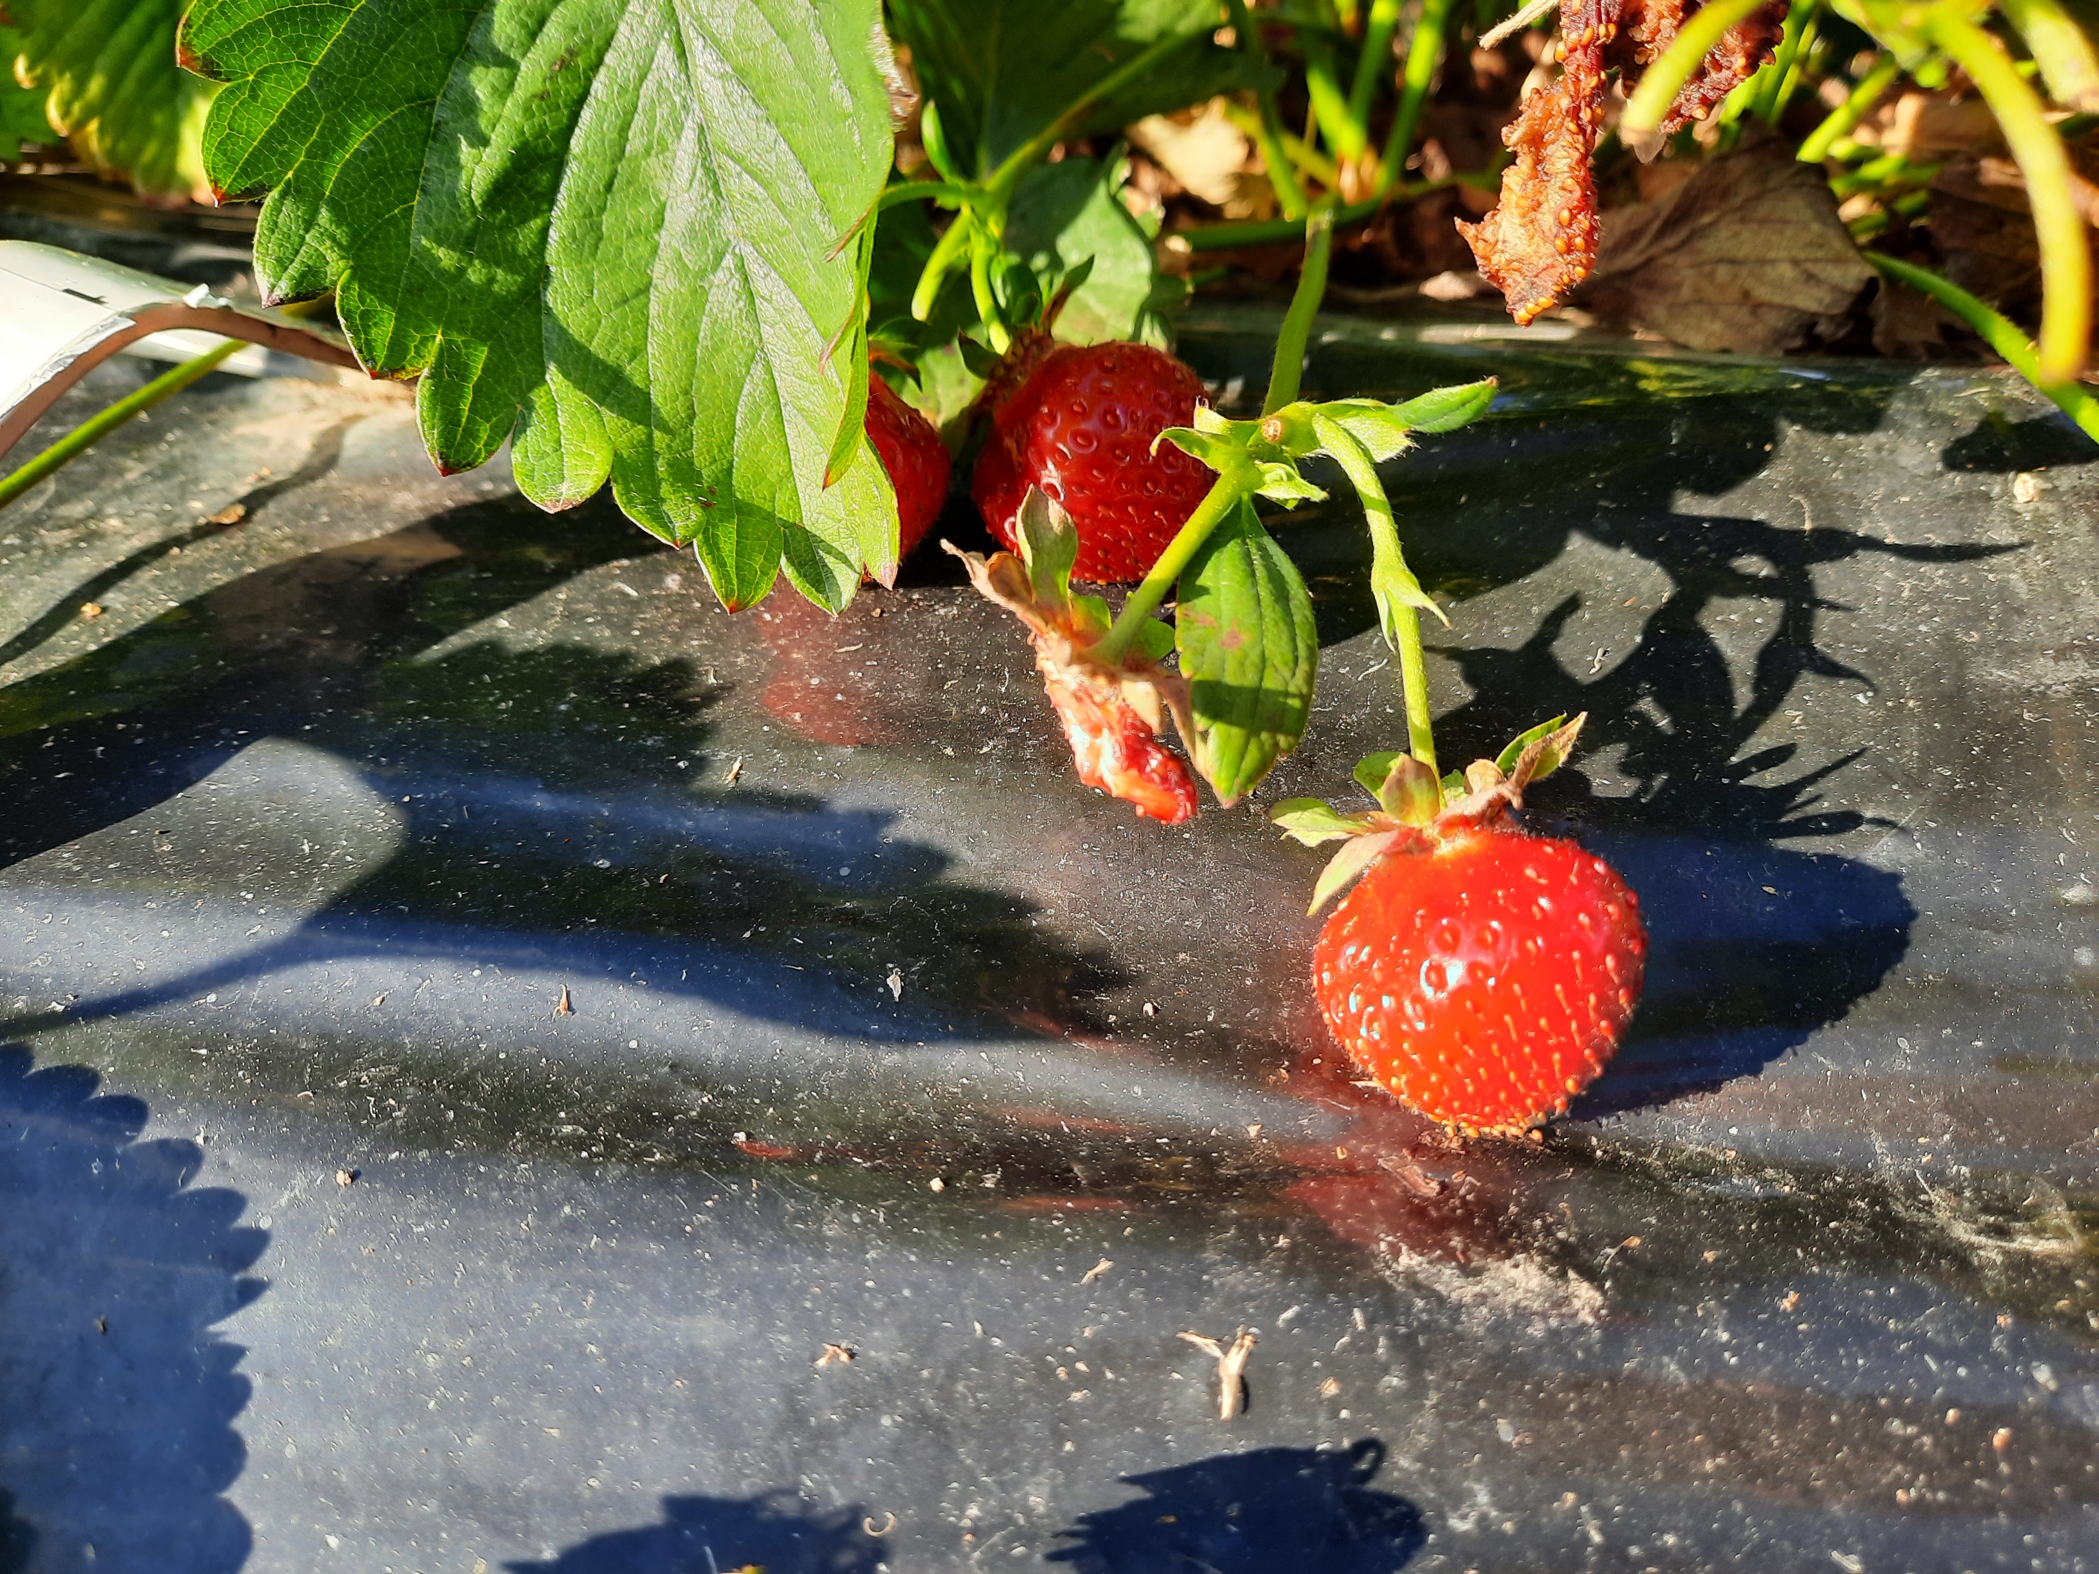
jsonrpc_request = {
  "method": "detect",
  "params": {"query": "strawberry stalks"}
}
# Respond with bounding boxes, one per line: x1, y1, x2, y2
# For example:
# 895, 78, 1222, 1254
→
1347, 449, 1436, 913
956, 209, 1052, 415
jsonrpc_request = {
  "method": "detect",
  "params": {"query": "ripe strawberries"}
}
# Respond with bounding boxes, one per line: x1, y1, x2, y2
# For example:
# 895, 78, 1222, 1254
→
728, 364, 945, 590
1349, 816, 1635, 1112
995, 352, 1243, 605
